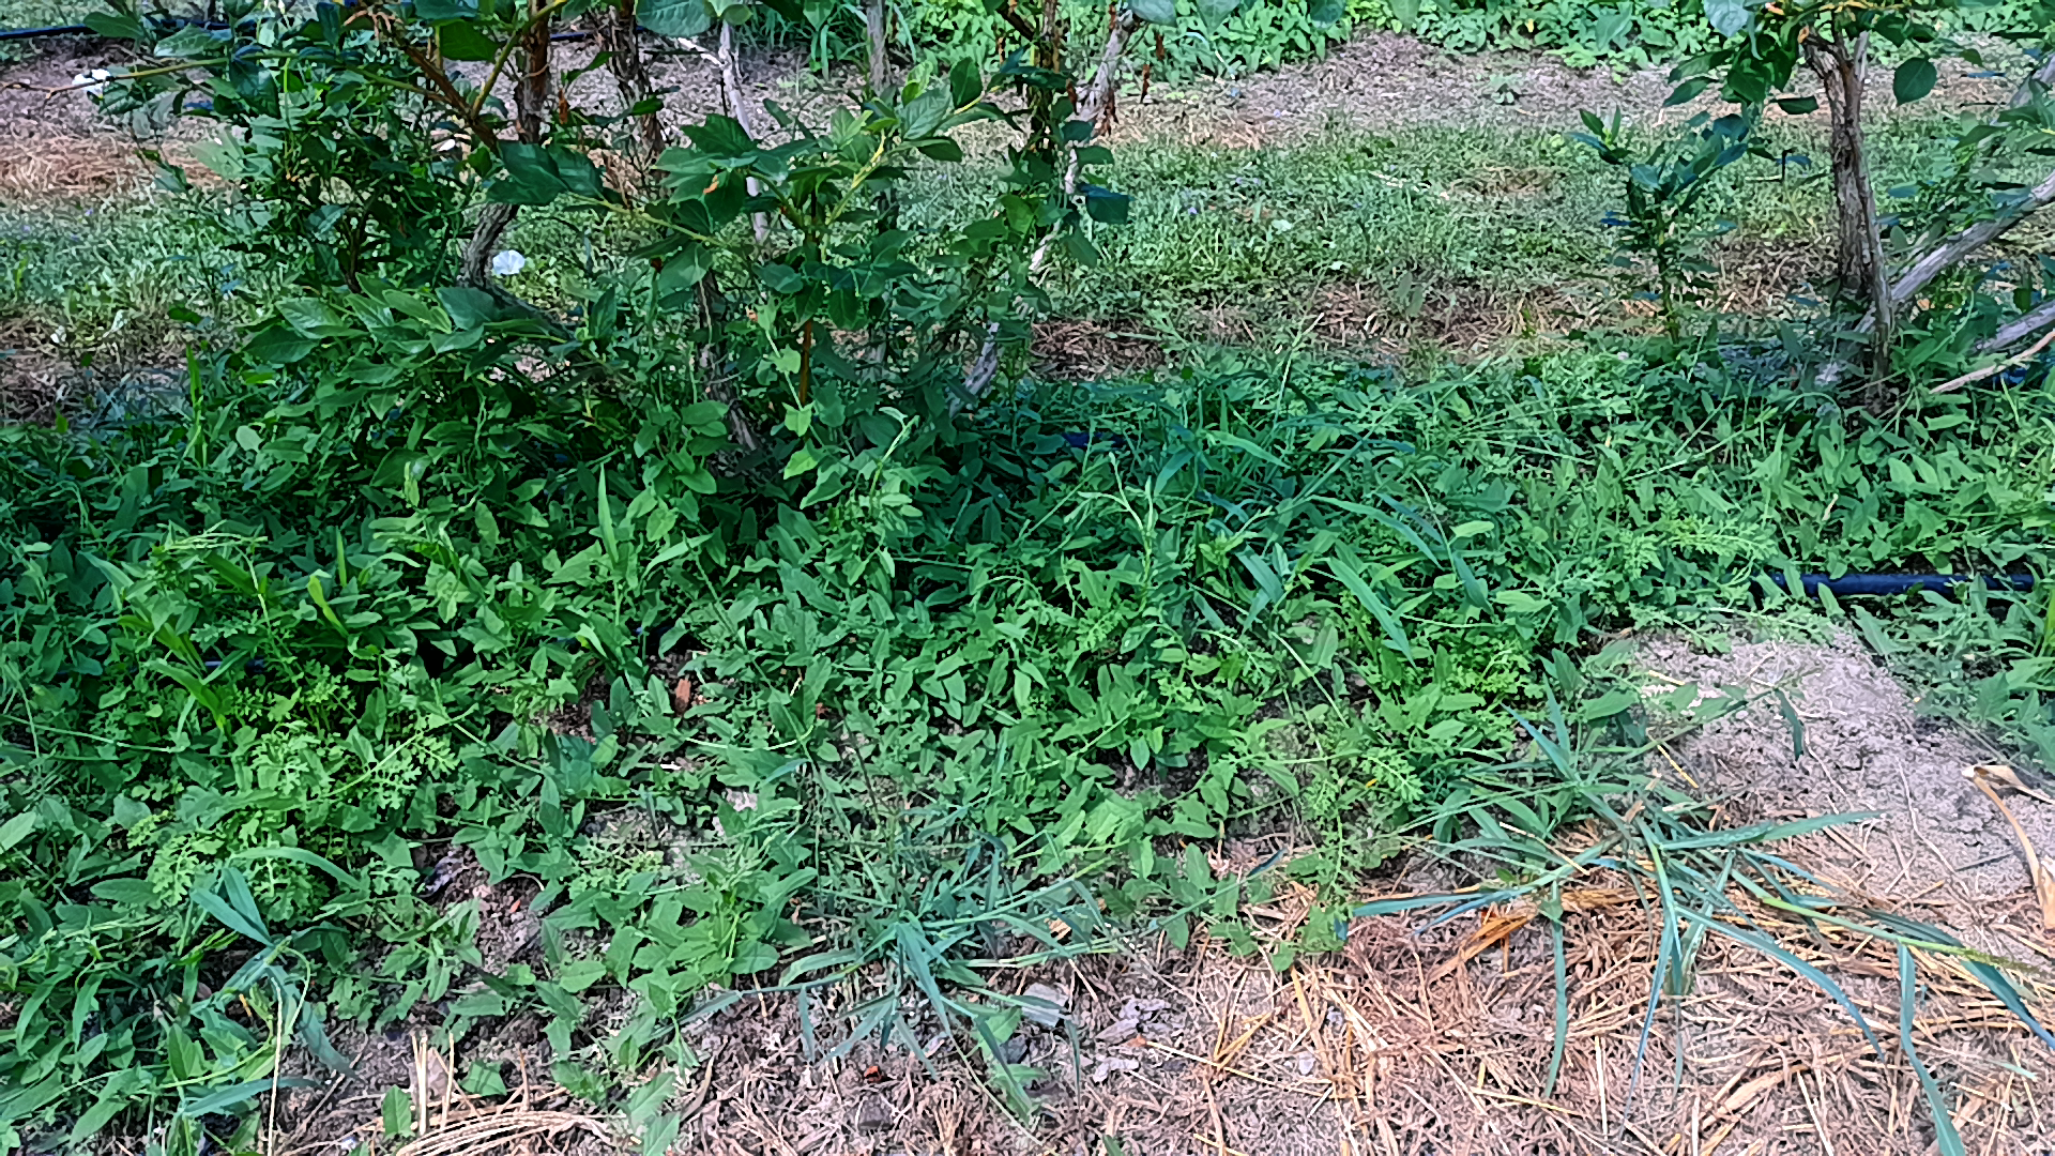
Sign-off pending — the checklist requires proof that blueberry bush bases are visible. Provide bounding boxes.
[176,190,1094,632]
[1763,159,2051,542]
